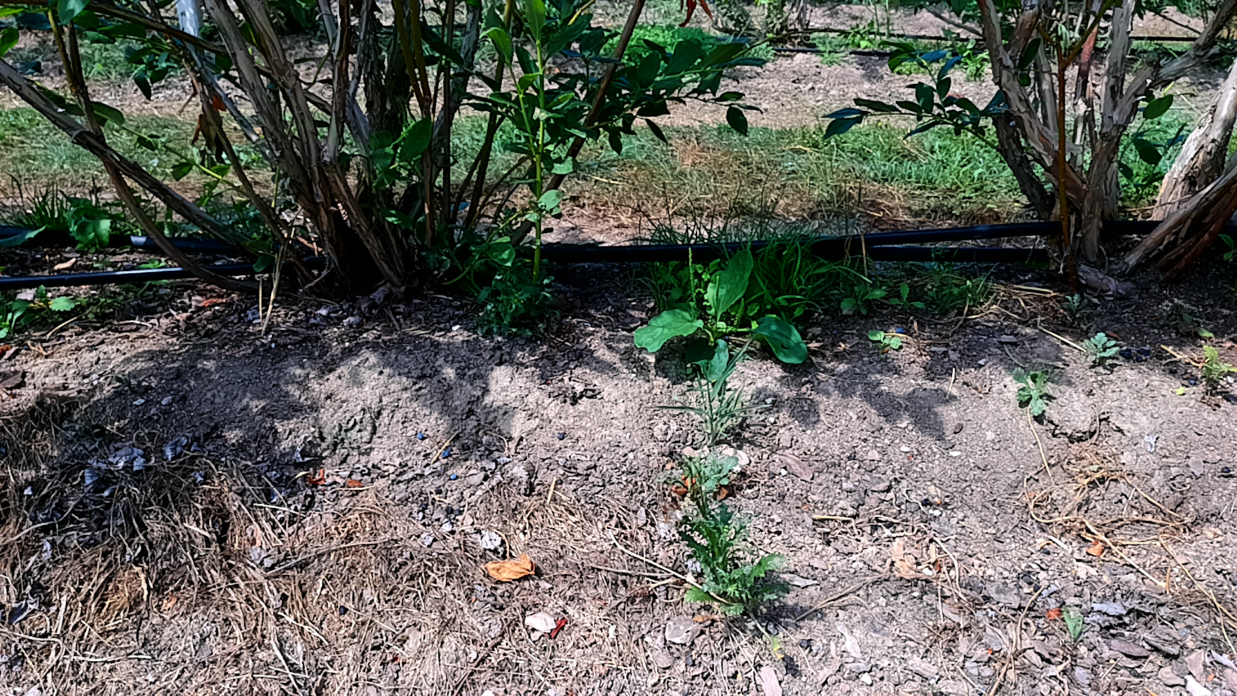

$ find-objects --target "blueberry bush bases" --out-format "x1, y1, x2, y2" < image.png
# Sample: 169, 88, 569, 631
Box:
128, 79, 550, 363
976, 64, 1237, 327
